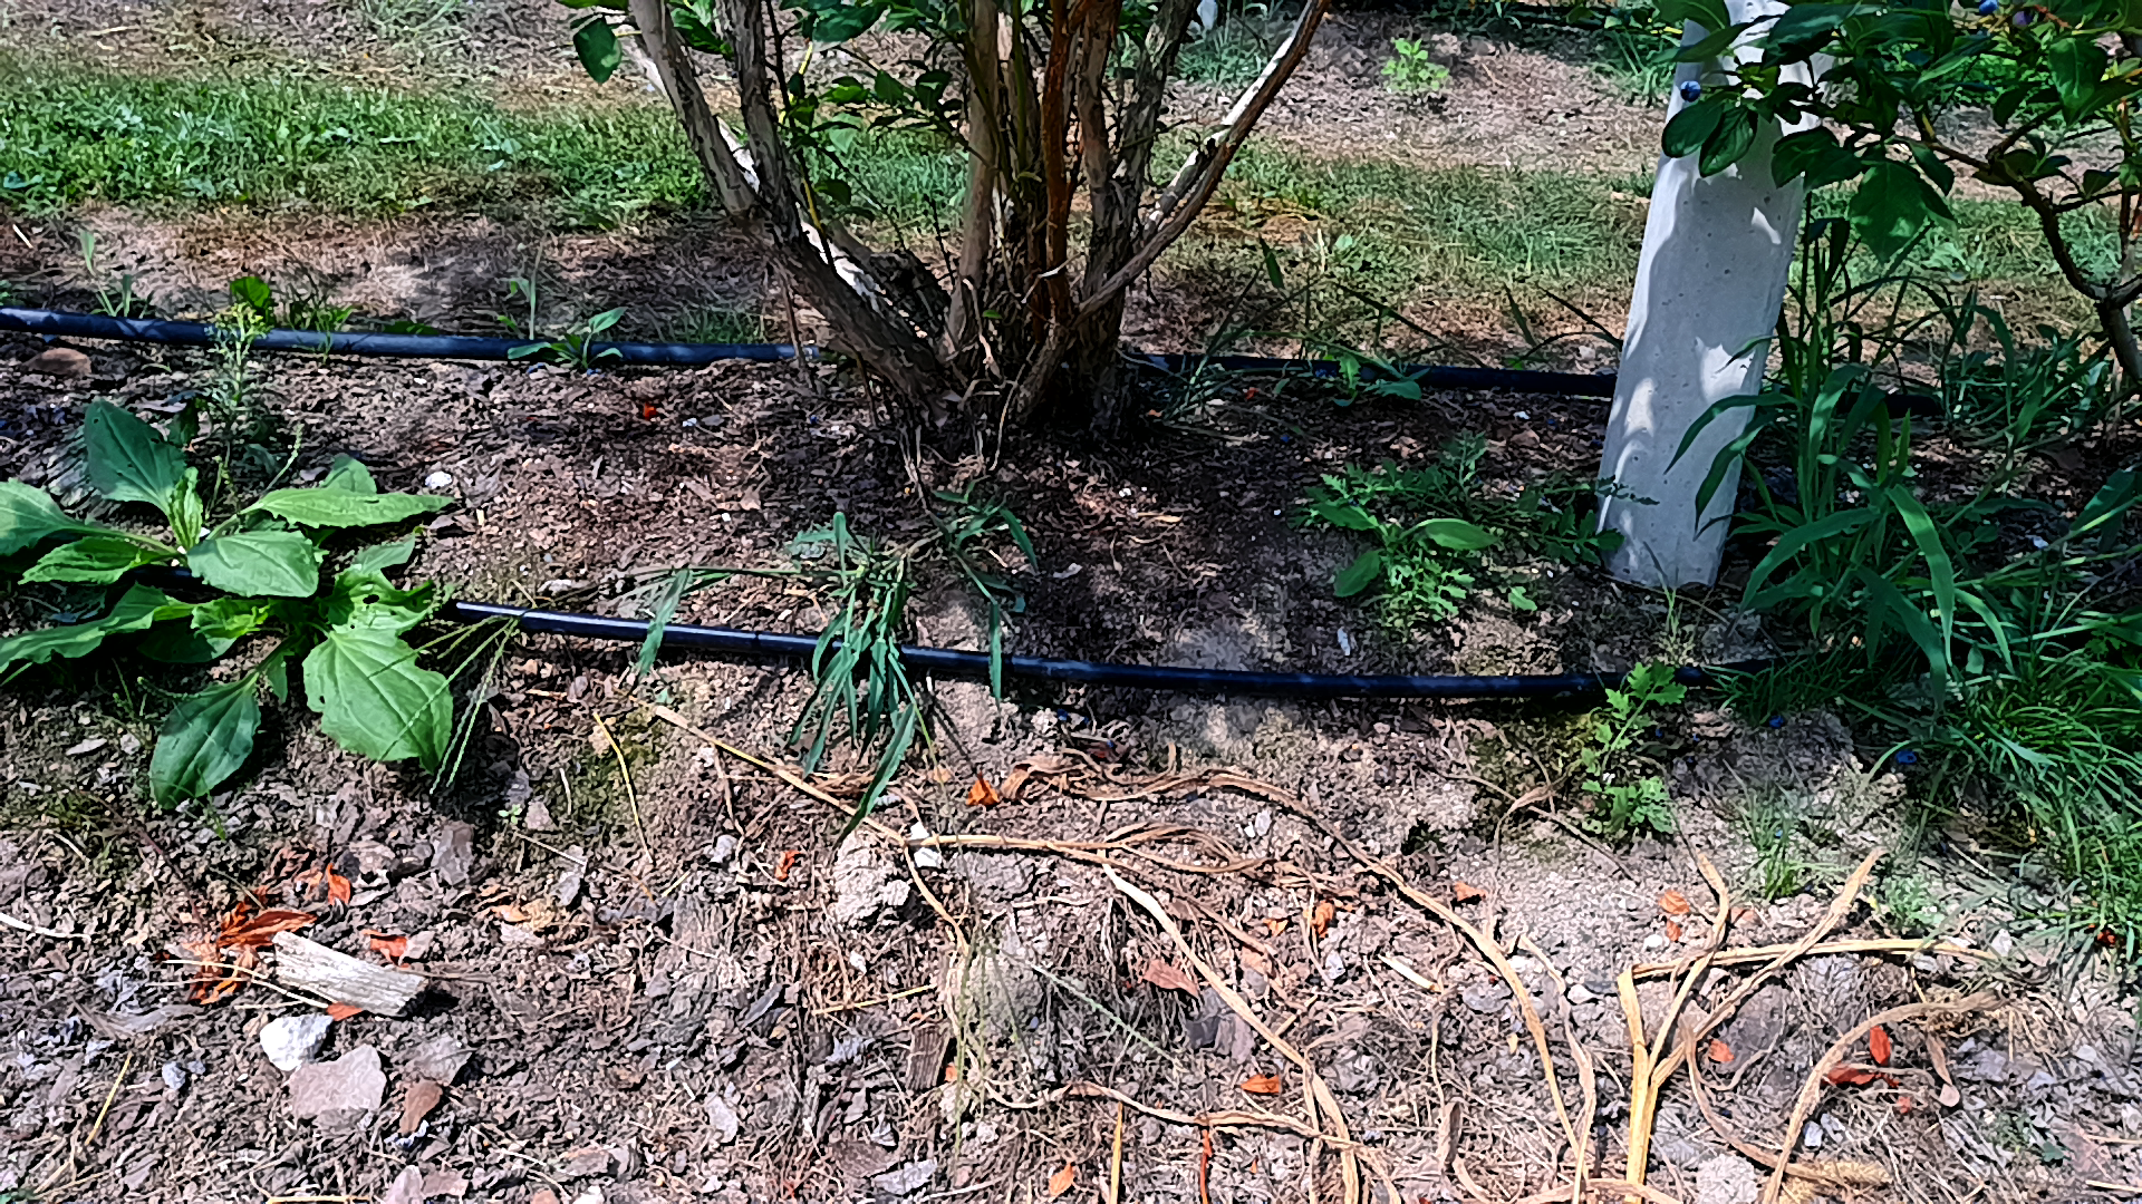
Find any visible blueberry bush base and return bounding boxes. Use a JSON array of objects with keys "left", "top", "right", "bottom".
[{"left": 704, "top": 77, "right": 1284, "bottom": 544}]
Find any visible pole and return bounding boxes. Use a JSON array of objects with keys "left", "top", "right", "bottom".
[{"left": 1574, "top": 51, "right": 1823, "bottom": 619}]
